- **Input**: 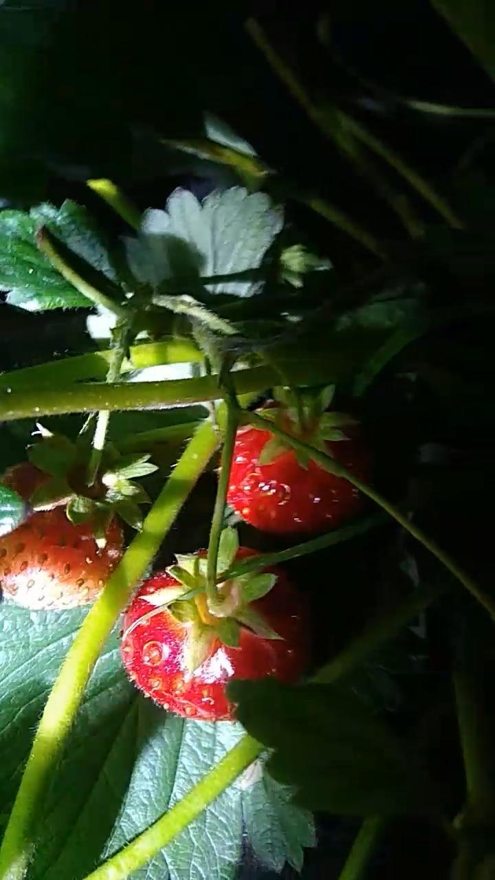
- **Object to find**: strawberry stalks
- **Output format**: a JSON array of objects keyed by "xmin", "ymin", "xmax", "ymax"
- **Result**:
[
  {"xmin": 64, "ymin": 391, "xmax": 122, "ymax": 504},
  {"xmin": 276, "ymin": 340, "xmax": 344, "ymax": 467},
  {"xmin": 184, "ymin": 378, "xmax": 251, "ymax": 656}
]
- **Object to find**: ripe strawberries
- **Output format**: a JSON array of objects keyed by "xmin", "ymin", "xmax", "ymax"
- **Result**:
[
  {"xmin": 217, "ymin": 403, "xmax": 395, "ymax": 529},
  {"xmin": 0, "ymin": 466, "xmax": 124, "ymax": 625},
  {"xmin": 129, "ymin": 548, "xmax": 314, "ymax": 728}
]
